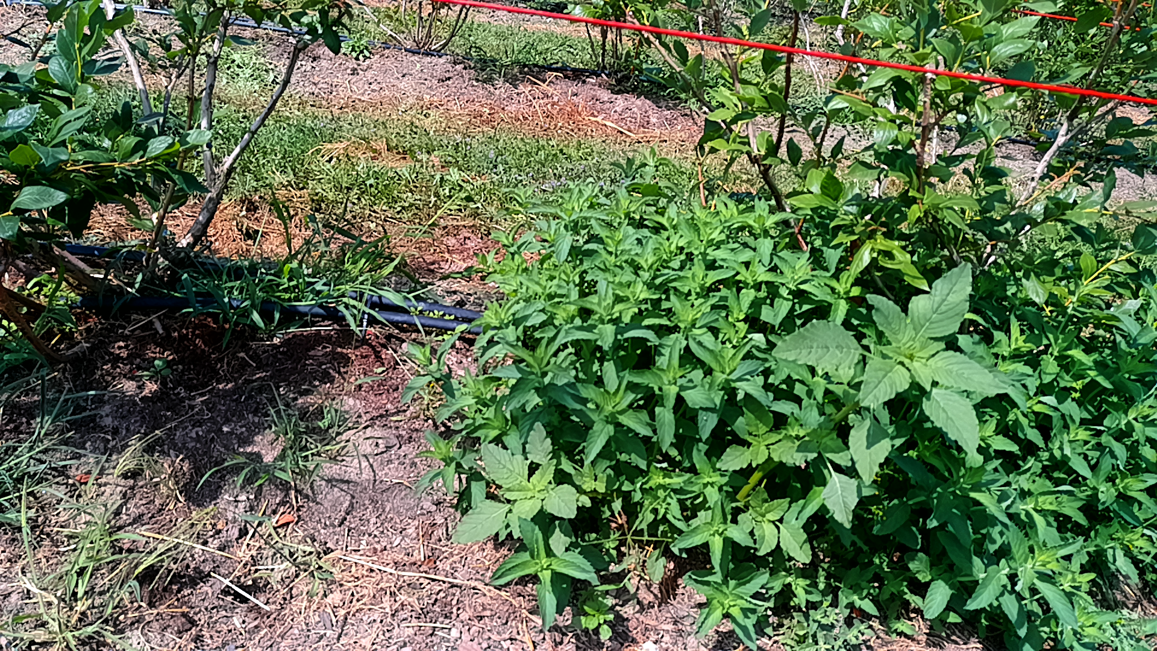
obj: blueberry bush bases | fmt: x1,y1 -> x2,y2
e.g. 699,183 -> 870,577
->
581,40 -> 653,90
727,139 -> 1083,366
390,26 -> 458,65
17,124 -> 272,392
